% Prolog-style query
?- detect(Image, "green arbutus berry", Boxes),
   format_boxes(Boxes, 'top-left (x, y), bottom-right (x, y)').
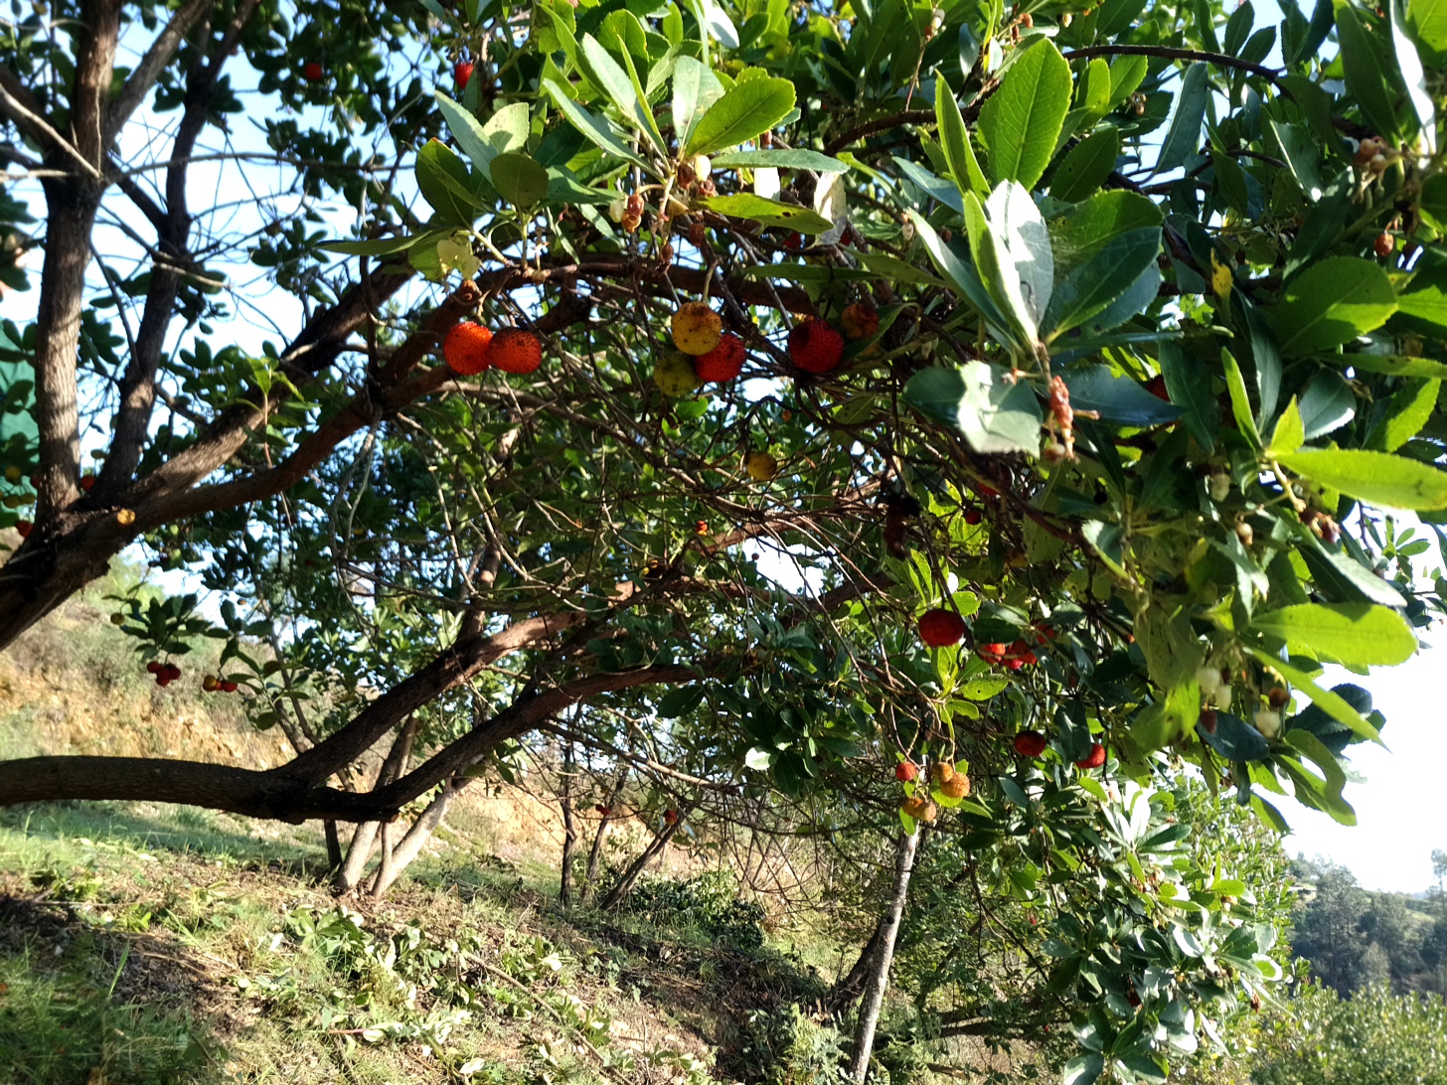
top-left (651, 342), bottom-right (704, 396)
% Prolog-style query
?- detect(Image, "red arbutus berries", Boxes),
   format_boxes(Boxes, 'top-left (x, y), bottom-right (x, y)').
top-left (491, 325), bottom-right (542, 375)
top-left (697, 333), bottom-right (749, 384)
top-left (996, 642), bottom-right (1023, 670)
top-left (1013, 636), bottom-right (1044, 665)
top-left (1015, 729), bottom-right (1045, 757)
top-left (18, 522), bottom-right (34, 536)
top-left (692, 519), bottom-right (709, 533)
top-left (215, 676), bottom-right (225, 693)
top-left (78, 472), bottom-right (97, 492)
top-left (156, 676), bottom-right (170, 686)
top-left (895, 762), bottom-right (916, 783)
top-left (305, 63), bottom-right (323, 80)
top-left (156, 665), bottom-right (170, 679)
top-left (456, 62), bottom-right (475, 85)
top-left (145, 660), bottom-right (158, 671)
top-left (1076, 743), bottom-right (1105, 770)
top-left (980, 638), bottom-right (1005, 663)
top-left (443, 320), bottom-right (495, 376)
top-left (917, 608), bottom-right (963, 647)
top-left (223, 677), bottom-right (238, 693)
top-left (1036, 625), bottom-right (1055, 644)
top-left (166, 666), bottom-right (183, 679)
top-left (785, 316), bottom-right (842, 371)
top-left (964, 507), bottom-right (985, 524)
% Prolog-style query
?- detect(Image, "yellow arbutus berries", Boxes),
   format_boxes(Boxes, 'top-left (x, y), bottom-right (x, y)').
top-left (902, 793), bottom-right (920, 814)
top-left (917, 804), bottom-right (938, 823)
top-left (202, 674), bottom-right (216, 688)
top-left (673, 301), bottom-right (722, 354)
top-left (746, 449), bottom-right (779, 481)
top-left (941, 771), bottom-right (973, 800)
top-left (930, 758), bottom-right (953, 783)
top-left (841, 303), bottom-right (879, 338)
